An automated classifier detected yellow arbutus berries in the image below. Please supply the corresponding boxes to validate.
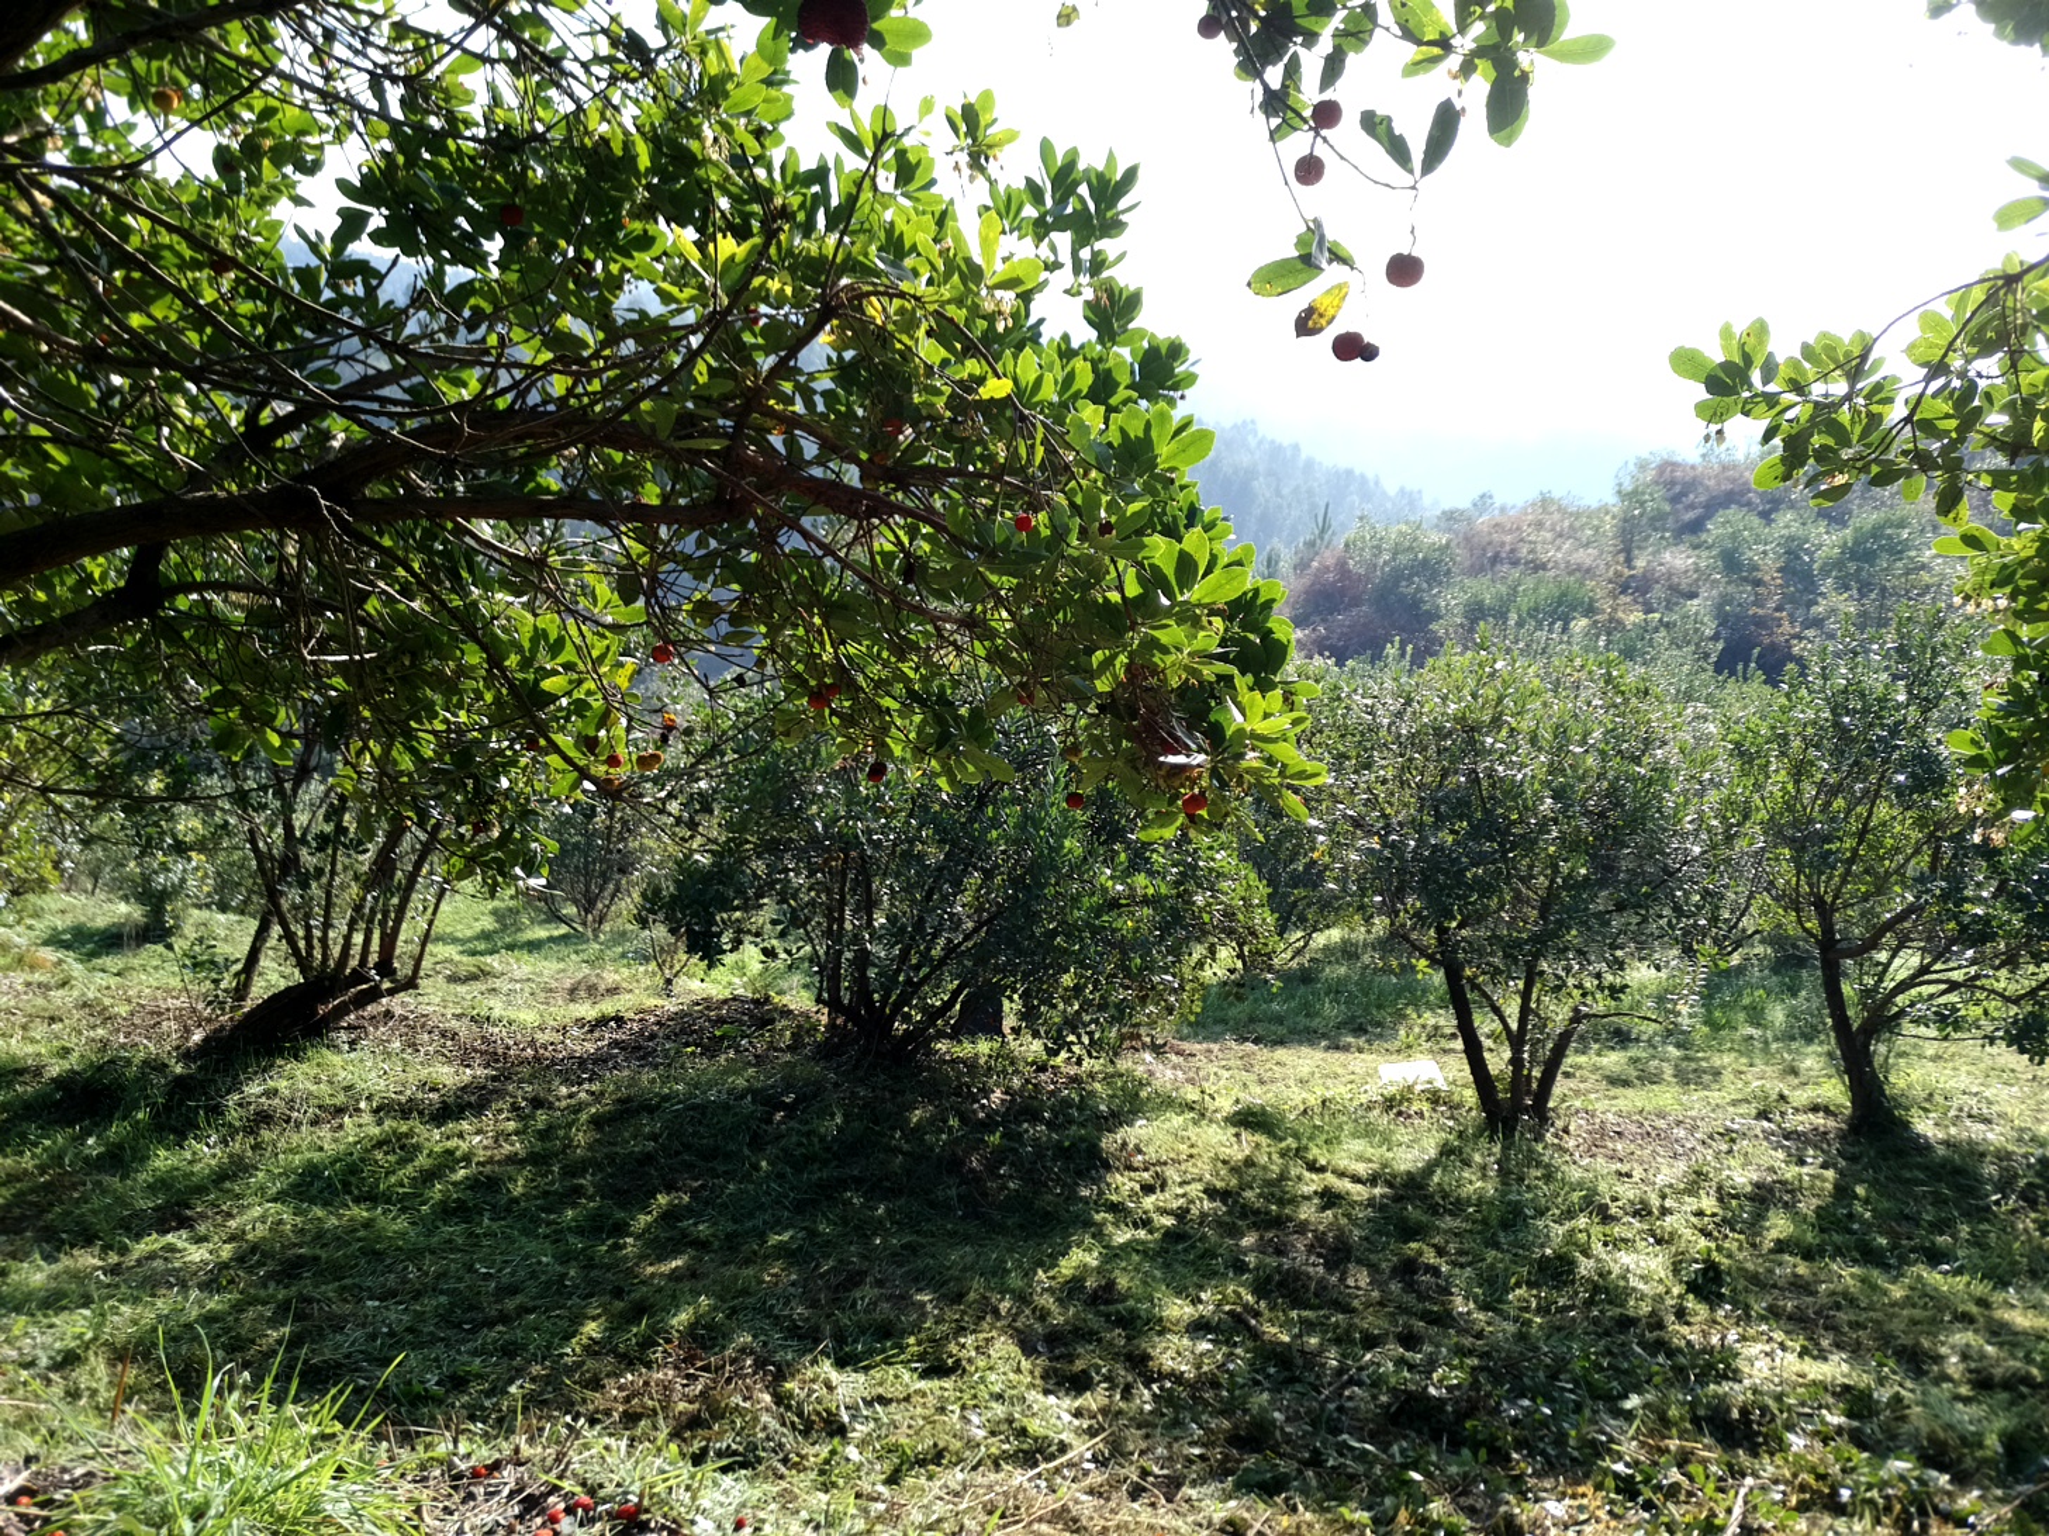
[650,752,664,765]
[153,87,178,111]
[636,750,657,771]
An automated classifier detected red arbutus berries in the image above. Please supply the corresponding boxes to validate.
[1387,248,1422,288]
[1312,100,1343,129]
[825,680,843,698]
[606,753,623,768]
[868,769,883,782]
[1015,511,1036,532]
[798,0,869,47]
[807,692,828,710]
[1066,792,1084,809]
[651,645,672,664]
[1333,329,1363,362]
[1181,792,1208,813]
[882,415,904,439]
[526,738,539,750]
